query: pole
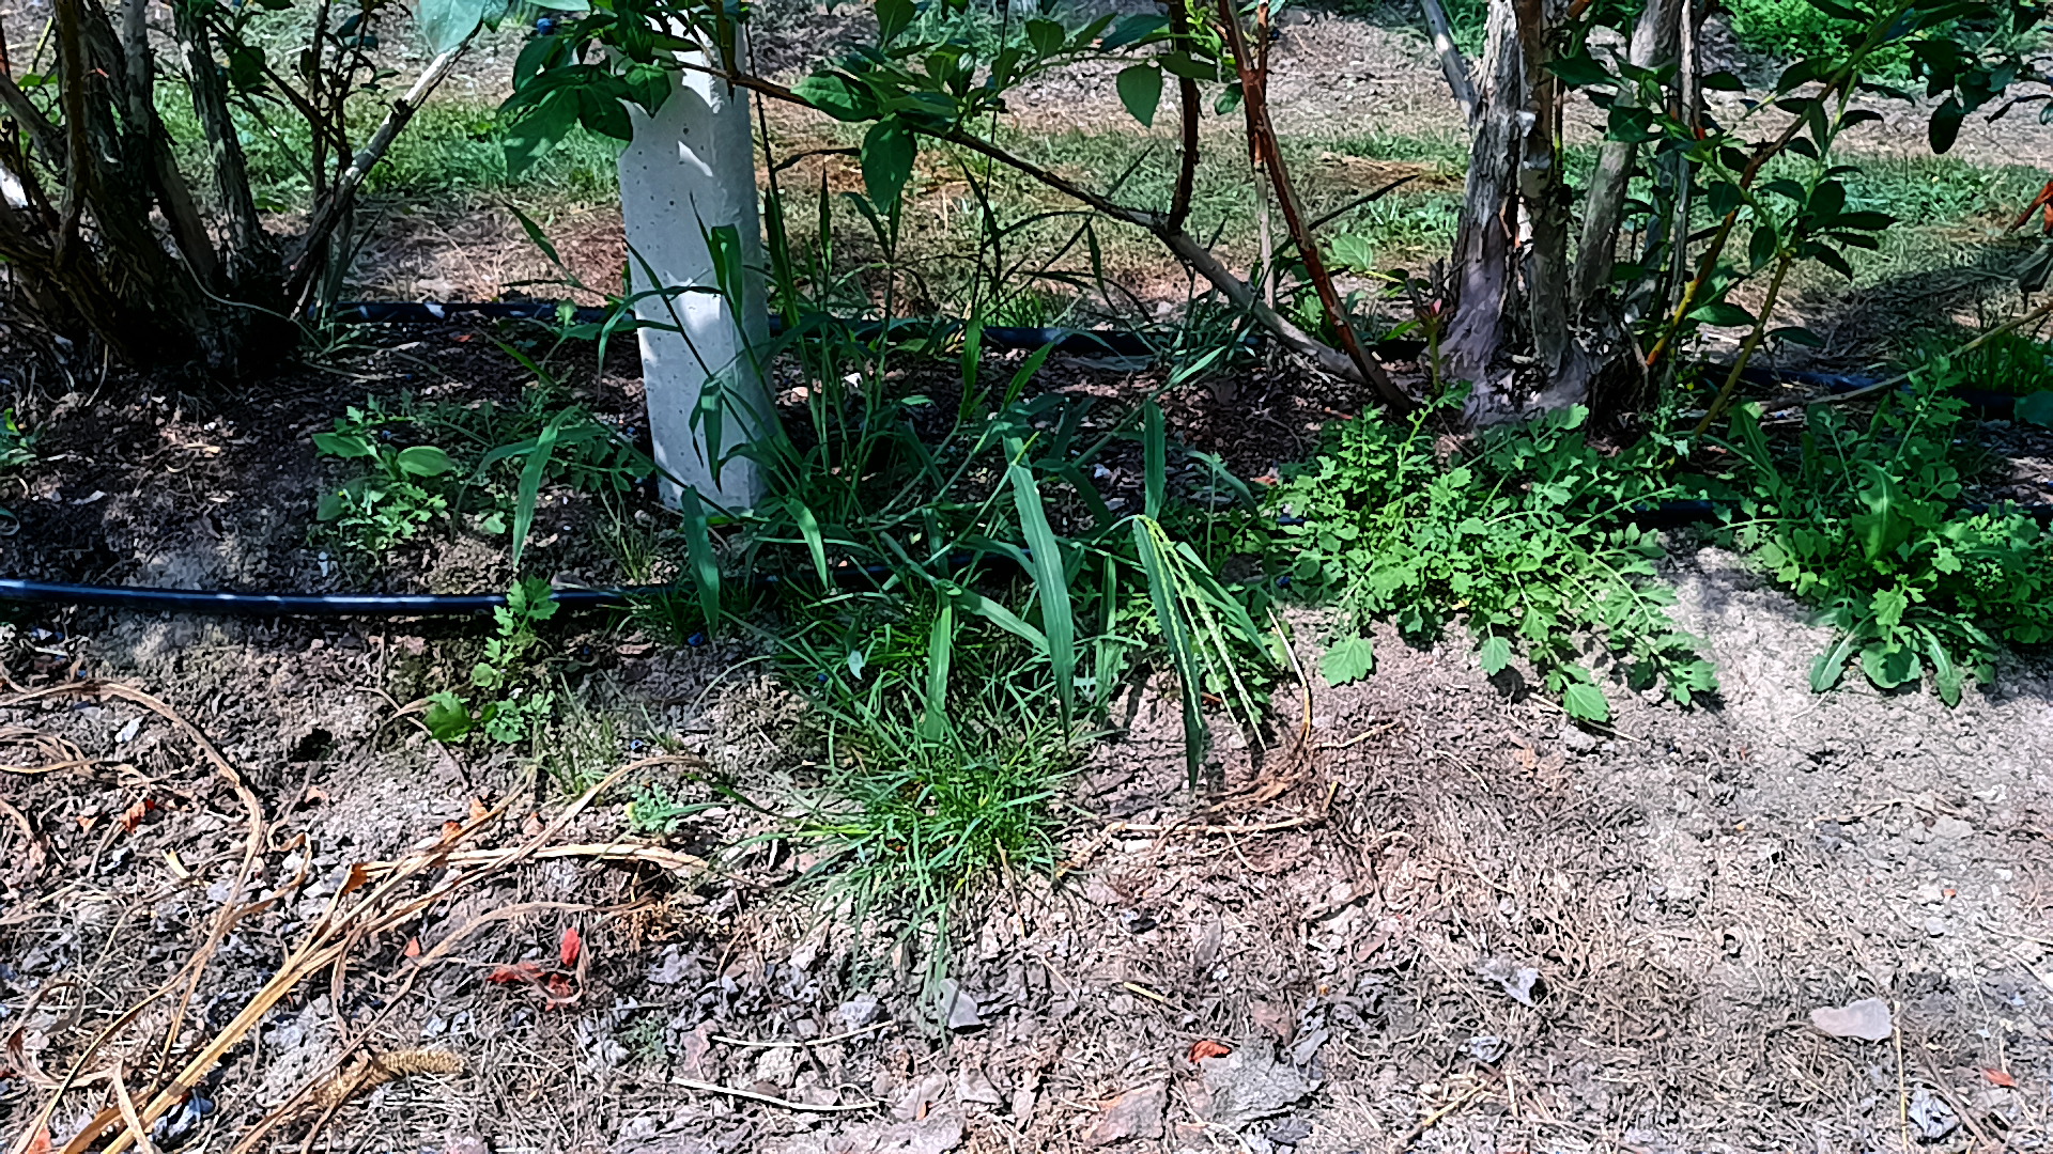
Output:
[598,85,809,543]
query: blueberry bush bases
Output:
[0,110,367,466]
[1182,129,1794,575]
